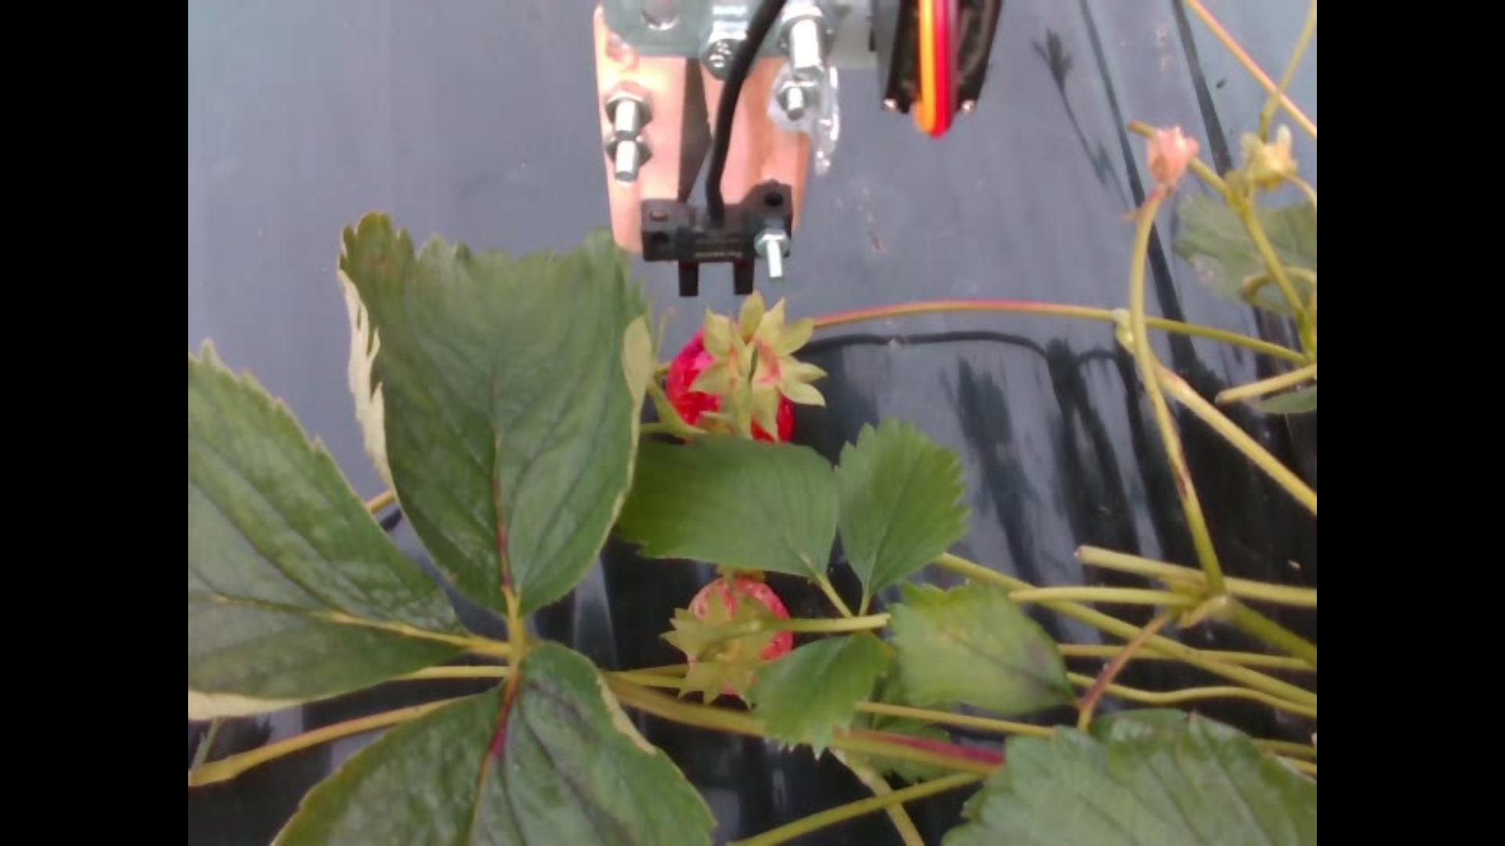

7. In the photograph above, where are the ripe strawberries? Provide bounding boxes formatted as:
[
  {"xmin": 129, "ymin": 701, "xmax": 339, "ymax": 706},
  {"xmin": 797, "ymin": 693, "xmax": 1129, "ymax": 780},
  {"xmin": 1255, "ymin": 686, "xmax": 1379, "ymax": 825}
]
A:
[
  {"xmin": 682, "ymin": 573, "xmax": 812, "ymax": 700},
  {"xmin": 651, "ymin": 304, "xmax": 809, "ymax": 456}
]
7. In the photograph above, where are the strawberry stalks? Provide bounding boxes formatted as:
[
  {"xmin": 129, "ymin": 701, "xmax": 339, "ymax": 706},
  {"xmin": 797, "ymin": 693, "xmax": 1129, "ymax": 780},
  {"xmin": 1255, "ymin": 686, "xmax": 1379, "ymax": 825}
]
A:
[
  {"xmin": 691, "ymin": 609, "xmax": 874, "ymax": 671},
  {"xmin": 755, "ymin": 305, "xmax": 884, "ymax": 338}
]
